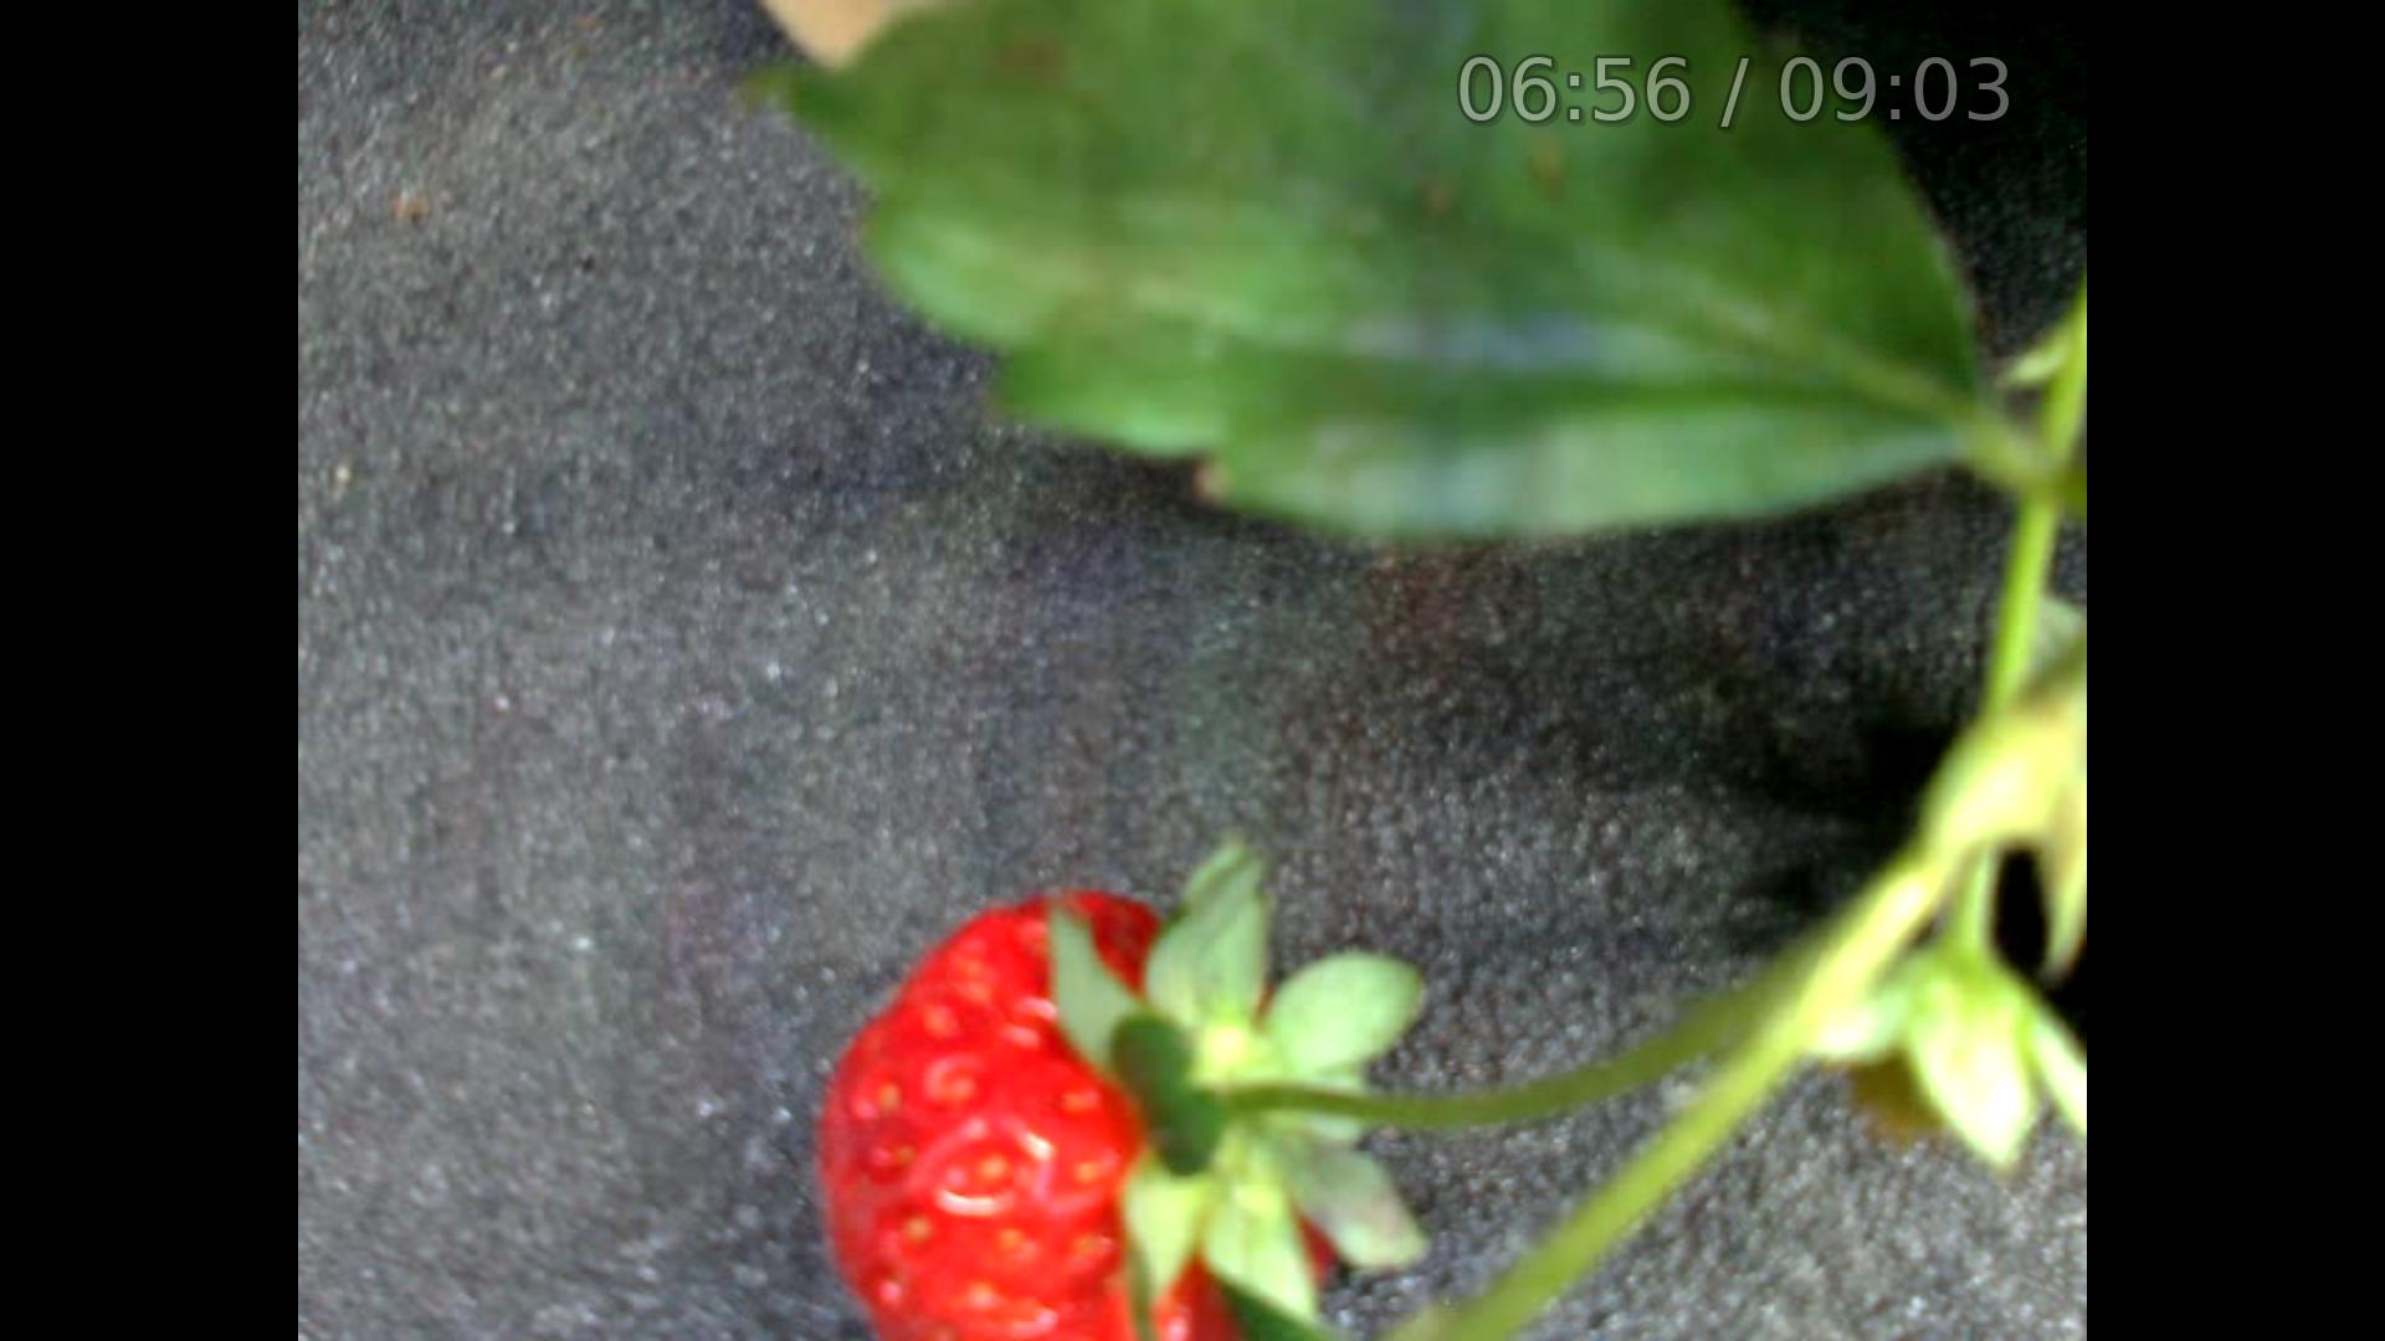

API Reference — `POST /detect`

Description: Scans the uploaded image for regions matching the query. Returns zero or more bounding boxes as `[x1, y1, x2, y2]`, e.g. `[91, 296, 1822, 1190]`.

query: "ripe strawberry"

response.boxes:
[739, 859, 1337, 1341]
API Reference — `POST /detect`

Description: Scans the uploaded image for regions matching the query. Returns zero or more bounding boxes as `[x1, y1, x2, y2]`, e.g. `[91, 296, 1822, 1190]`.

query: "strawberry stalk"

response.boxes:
[1101, 967, 1806, 1154]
